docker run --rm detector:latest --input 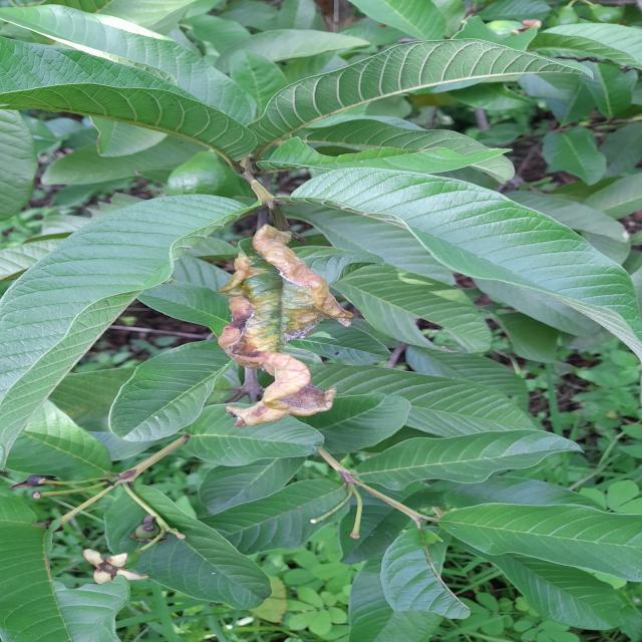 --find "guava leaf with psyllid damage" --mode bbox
[190,229,361,429]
